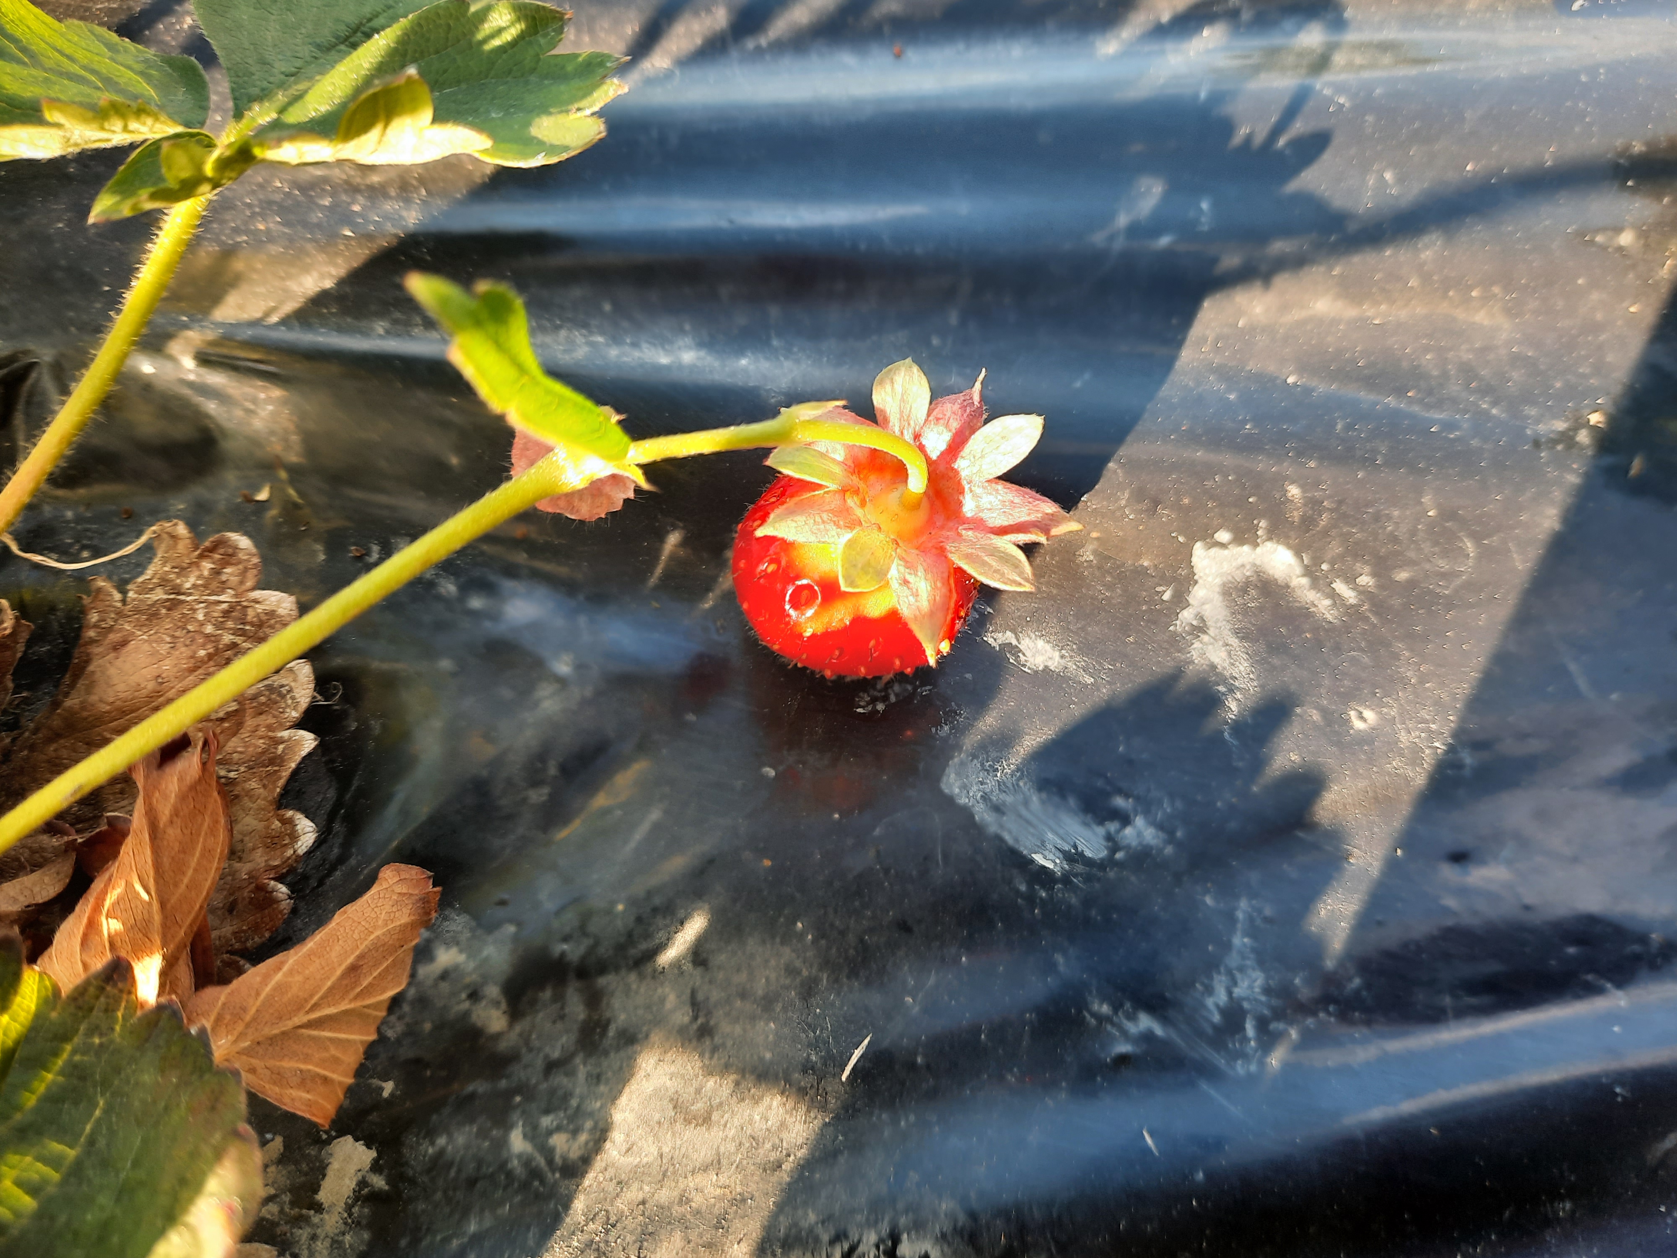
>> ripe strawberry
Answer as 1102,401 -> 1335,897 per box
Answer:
737,436 -> 976,671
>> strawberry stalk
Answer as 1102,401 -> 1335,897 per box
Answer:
658,413 -> 957,512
